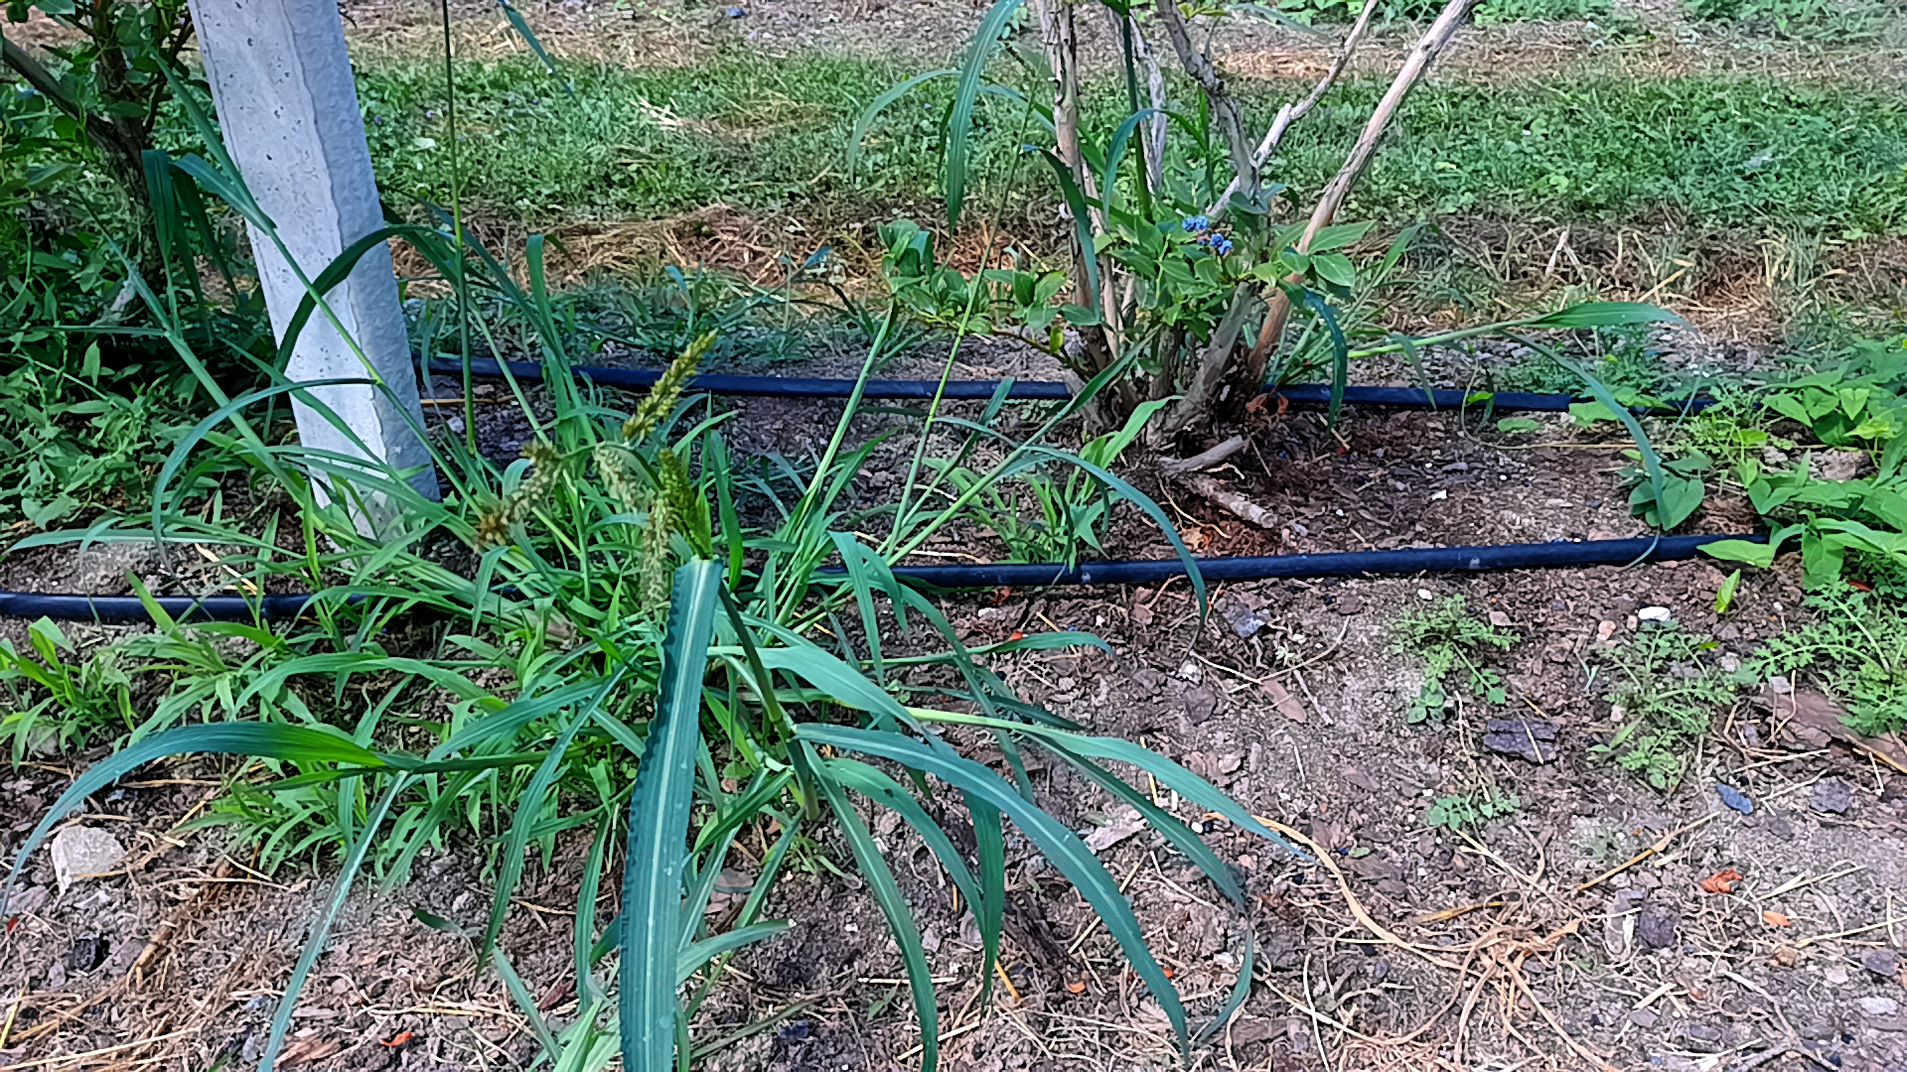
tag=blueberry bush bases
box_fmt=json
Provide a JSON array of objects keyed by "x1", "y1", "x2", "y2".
[
  {"x1": 0, "y1": 12, "x2": 173, "y2": 403},
  {"x1": 995, "y1": 179, "x2": 1378, "y2": 564}
]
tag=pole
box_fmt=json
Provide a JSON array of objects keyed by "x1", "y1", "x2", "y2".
[{"x1": 223, "y1": 14, "x2": 462, "y2": 546}]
